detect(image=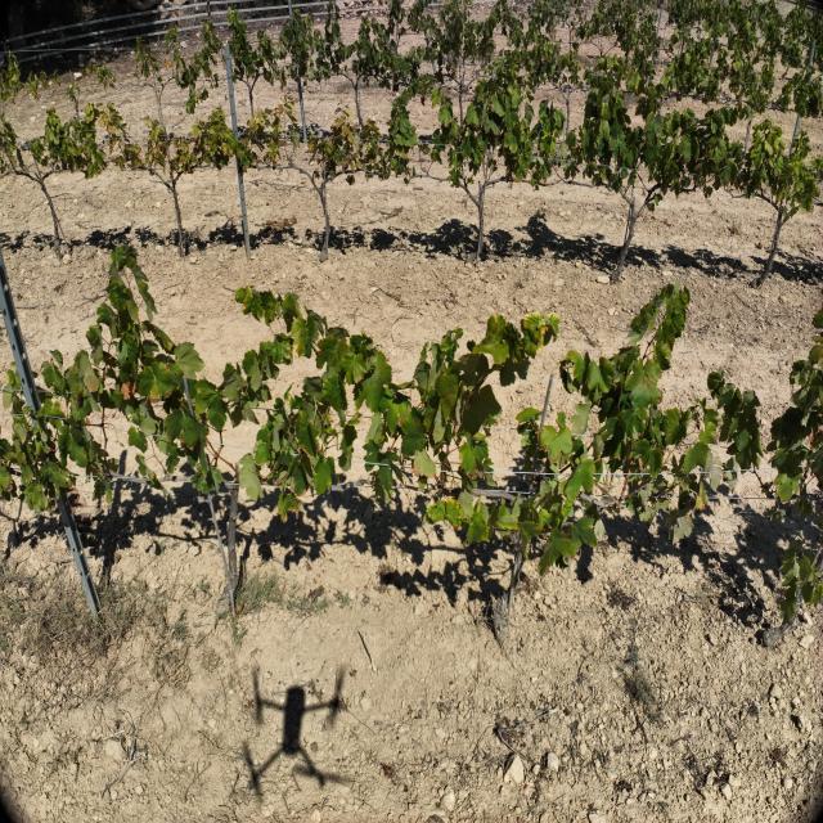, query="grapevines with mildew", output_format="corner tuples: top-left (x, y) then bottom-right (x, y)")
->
(719, 284), (823, 658)
(31, 237), (396, 645)
(386, 278), (718, 664)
